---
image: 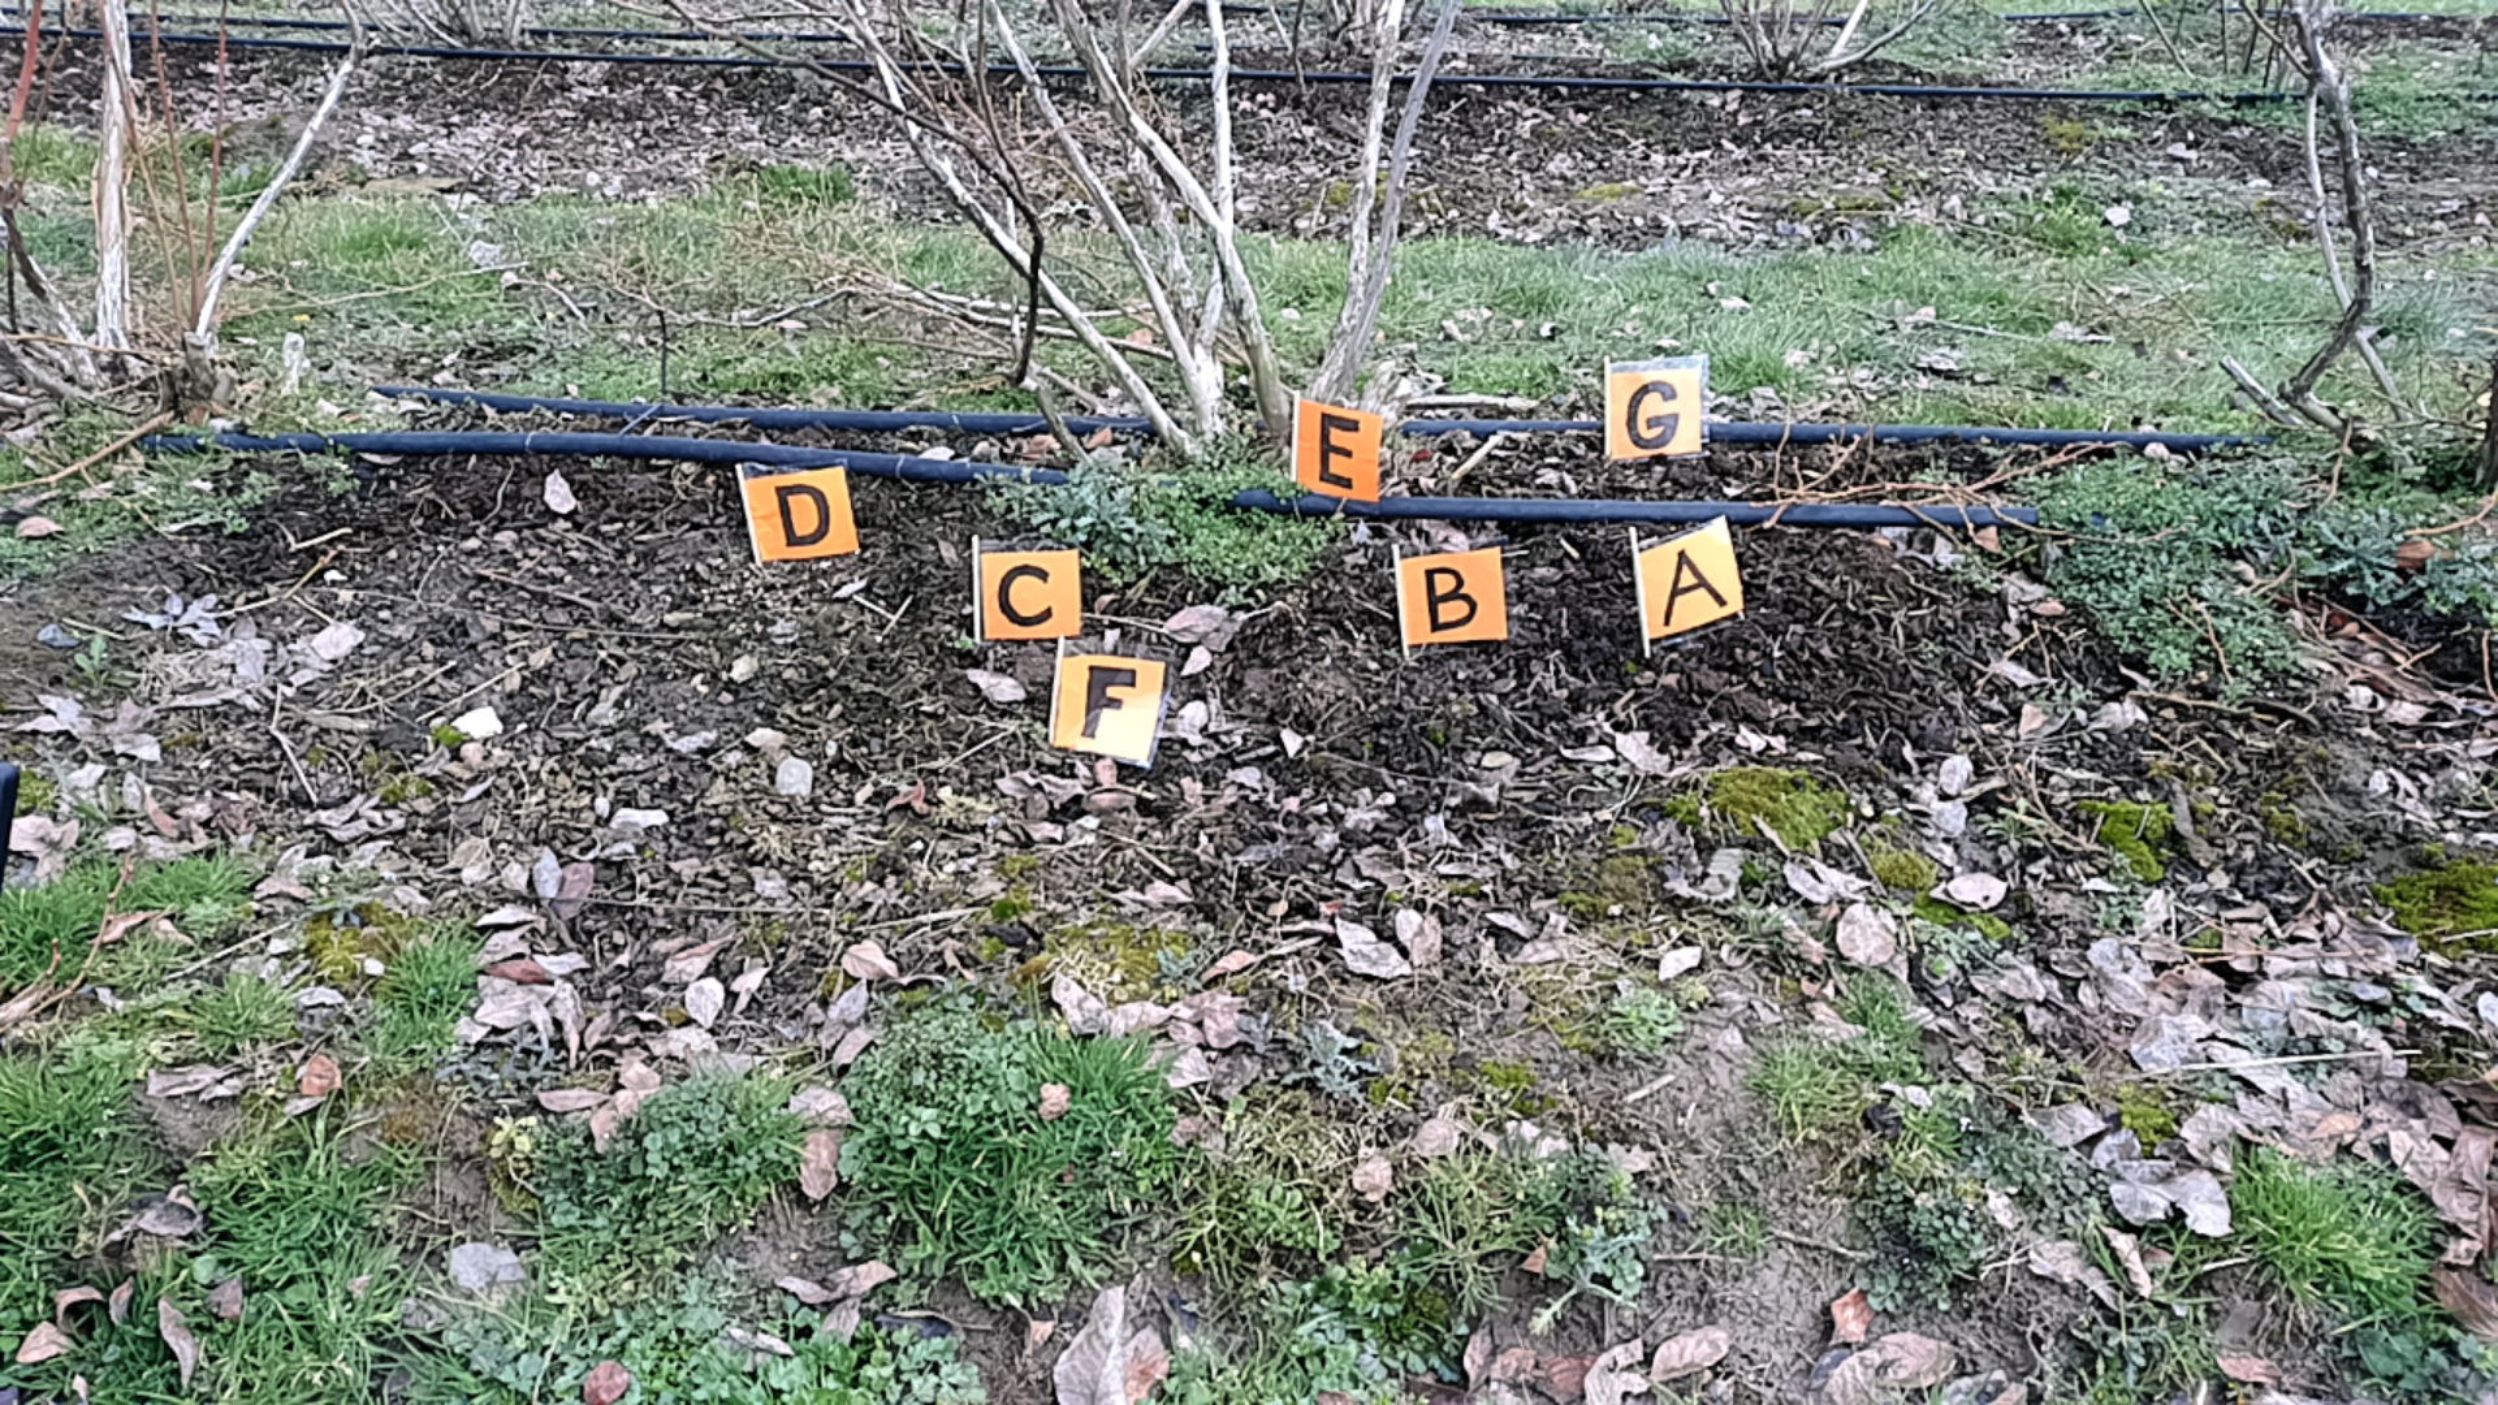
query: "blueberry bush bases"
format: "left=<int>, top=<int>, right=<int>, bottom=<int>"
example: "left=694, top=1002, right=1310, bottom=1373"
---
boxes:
left=2168, top=37, right=2304, bottom=126
left=359, top=7, right=554, bottom=78
left=1, top=196, right=296, bottom=464
left=1711, top=12, right=1862, bottom=112
left=2259, top=273, right=2494, bottom=552
left=1256, top=18, right=1455, bottom=91
left=999, top=267, right=1421, bottom=559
